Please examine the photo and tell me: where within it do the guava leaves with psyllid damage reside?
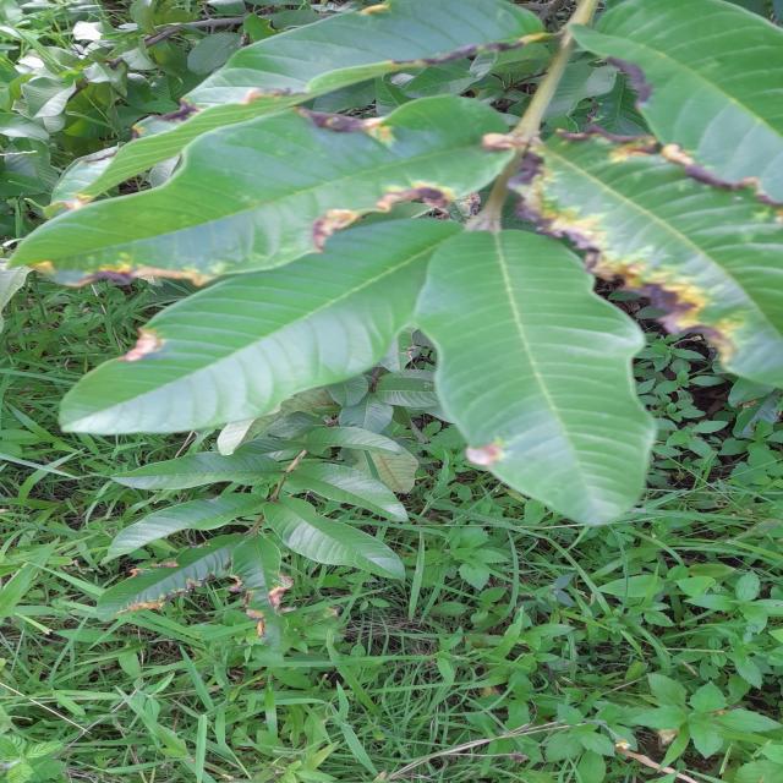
[422,218,671,532]
[5,93,540,308]
[64,206,476,451]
